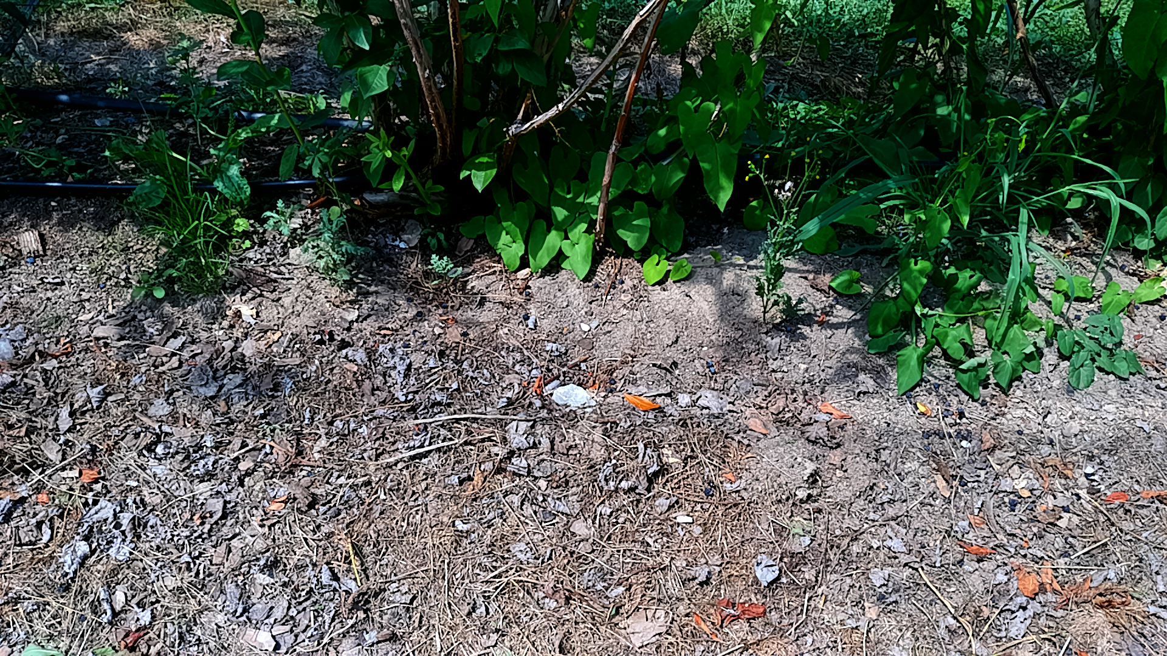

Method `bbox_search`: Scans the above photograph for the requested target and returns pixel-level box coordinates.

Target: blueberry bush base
[349,72,618,264]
